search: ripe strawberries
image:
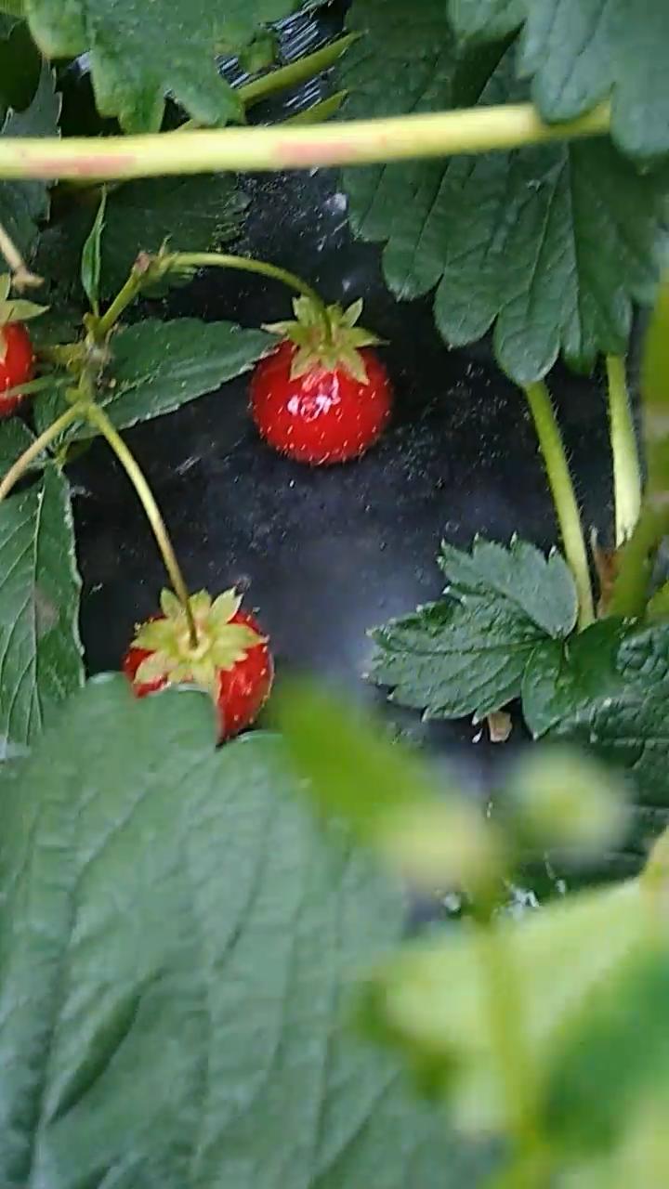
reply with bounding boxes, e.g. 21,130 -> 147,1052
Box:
126,601 -> 275,724
243,320 -> 396,474
0,271 -> 45,438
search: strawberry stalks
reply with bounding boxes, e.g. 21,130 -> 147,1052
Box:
256,253 -> 353,379
139,514 -> 228,659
